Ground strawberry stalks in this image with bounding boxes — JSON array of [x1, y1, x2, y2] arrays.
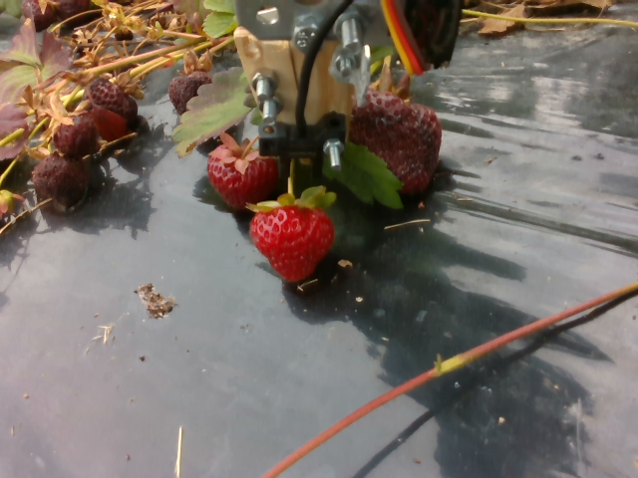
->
[[238, 118, 257, 166], [274, 164, 309, 213]]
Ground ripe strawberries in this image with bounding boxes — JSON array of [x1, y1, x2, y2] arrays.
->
[[243, 196, 346, 288], [203, 132, 283, 212]]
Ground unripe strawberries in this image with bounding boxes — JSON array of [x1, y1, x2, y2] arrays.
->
[[51, 113, 99, 159], [69, 72, 143, 134], [162, 67, 220, 121], [340, 84, 451, 199], [30, 150, 94, 214]]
